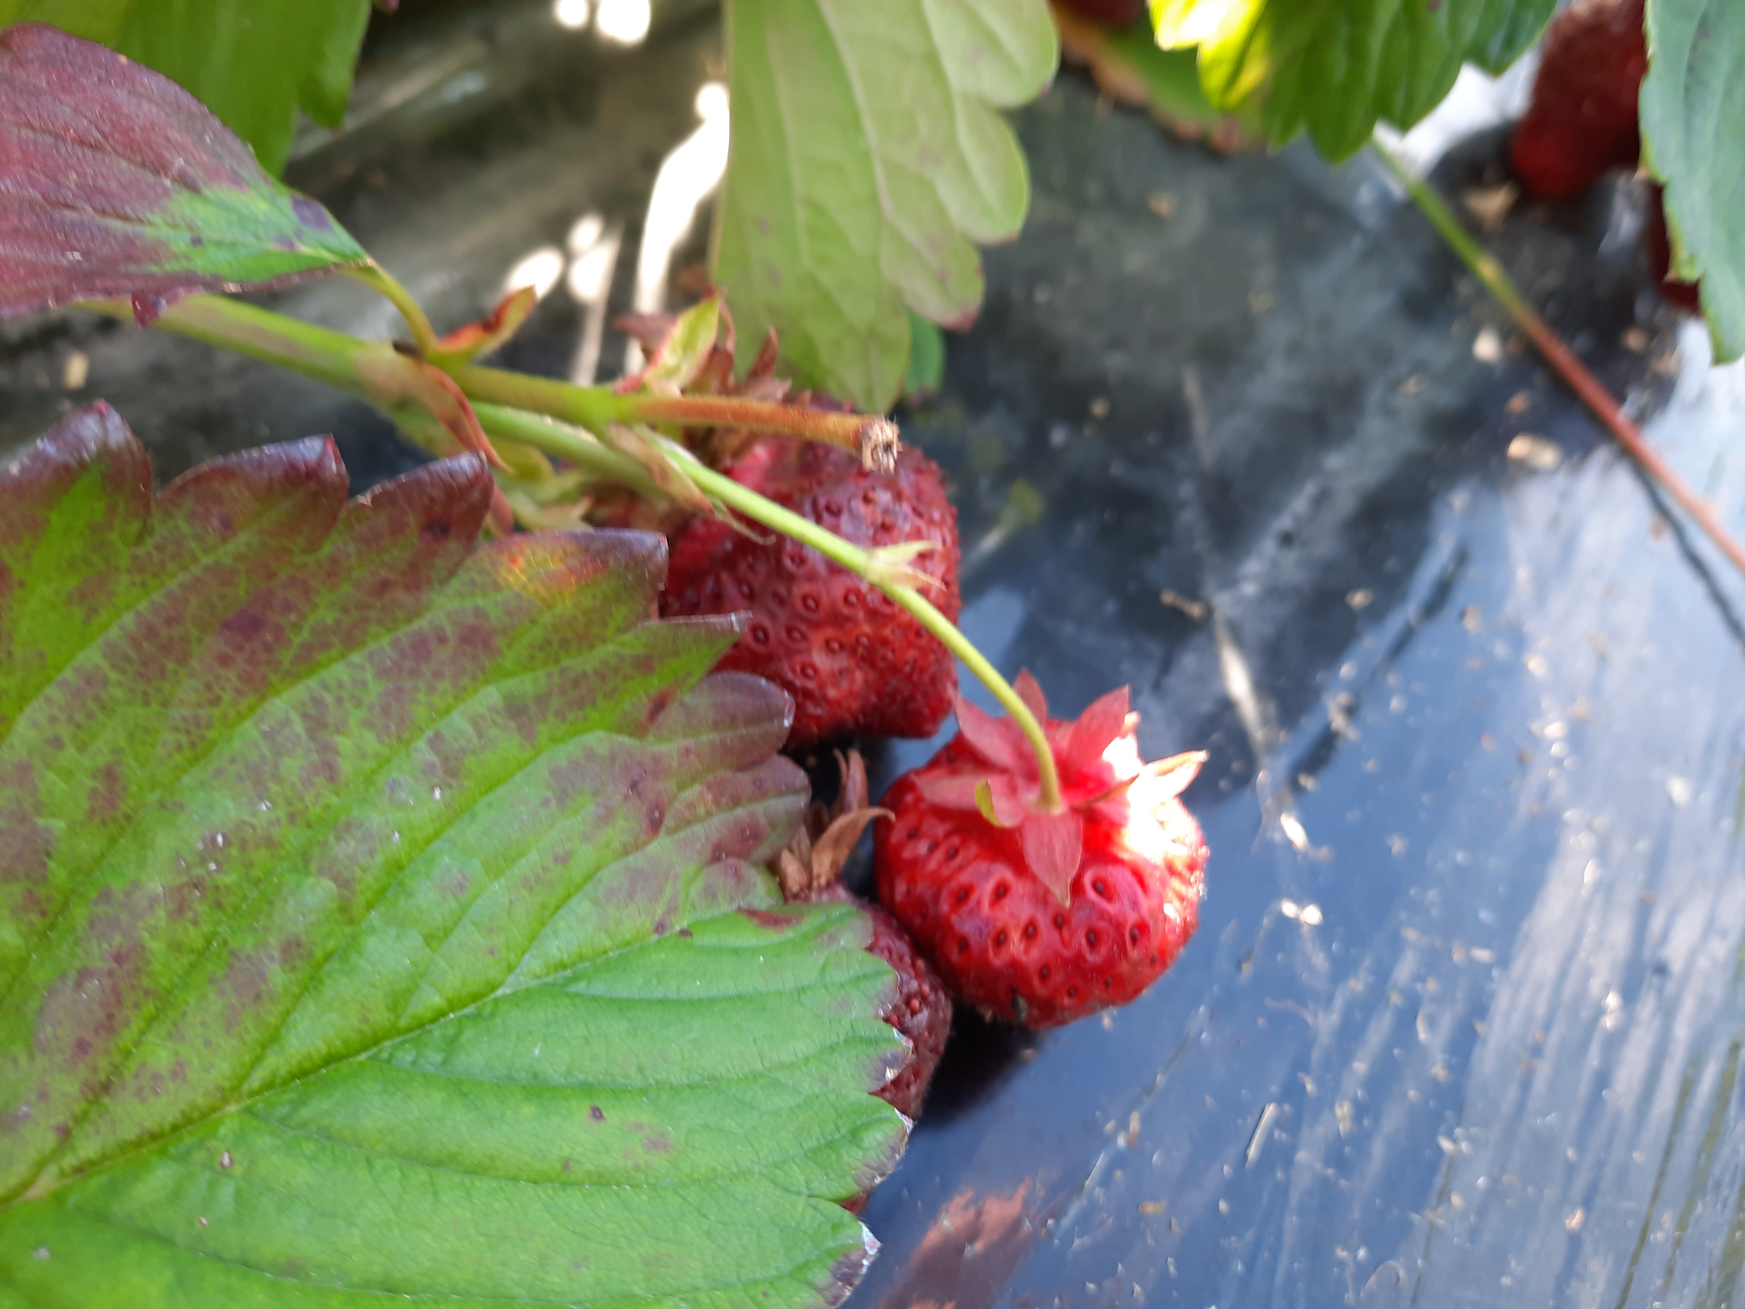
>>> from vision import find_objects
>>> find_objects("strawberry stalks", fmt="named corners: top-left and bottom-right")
top-left (778, 513), bottom-right (1096, 843)
top-left (432, 341), bottom-right (713, 560)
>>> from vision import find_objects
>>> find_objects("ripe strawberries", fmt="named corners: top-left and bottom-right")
top-left (885, 725), bottom-right (1197, 1005)
top-left (1488, 0), bottom-right (1683, 204)
top-left (622, 412), bottom-right (948, 727)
